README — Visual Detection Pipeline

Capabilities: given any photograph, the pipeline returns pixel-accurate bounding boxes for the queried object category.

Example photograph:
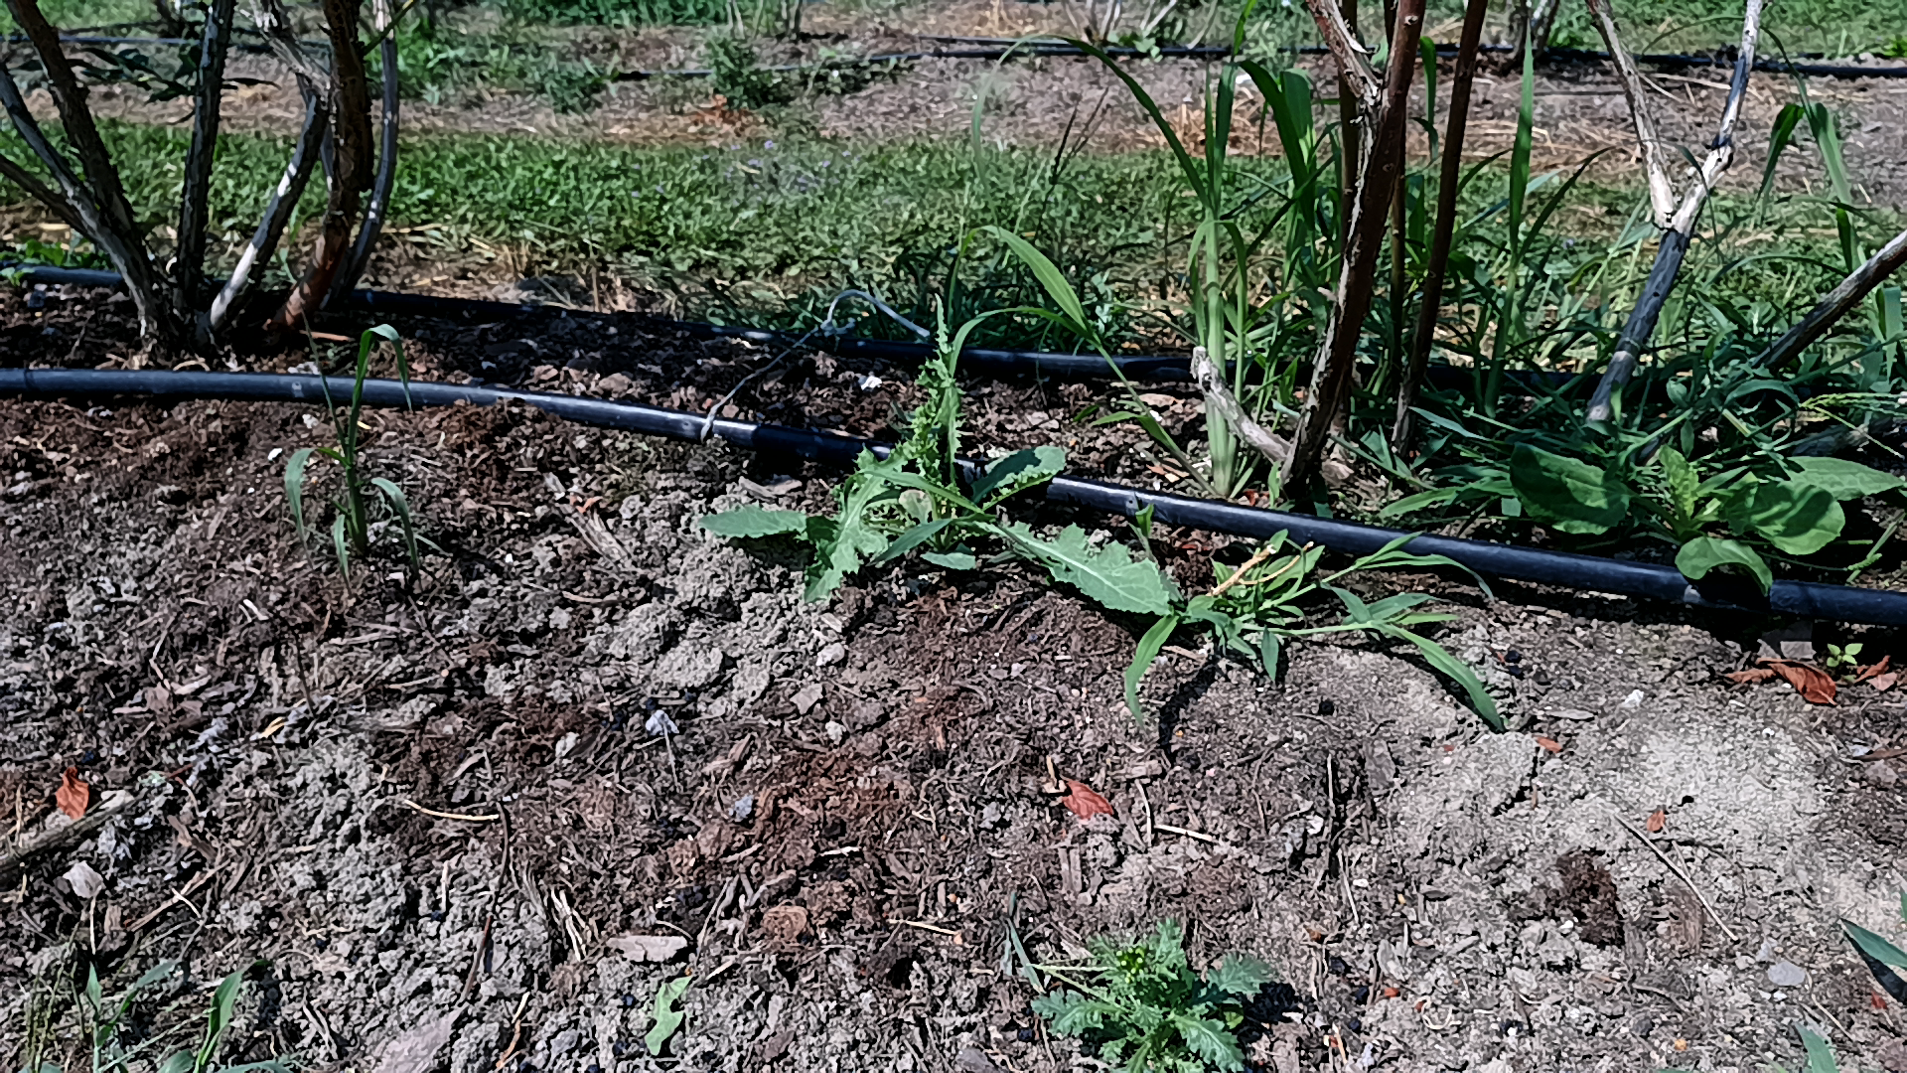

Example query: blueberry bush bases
[1061,6,1231,69]
[1127,160,1907,626]
[18,129,412,429]
[698,2,817,50]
